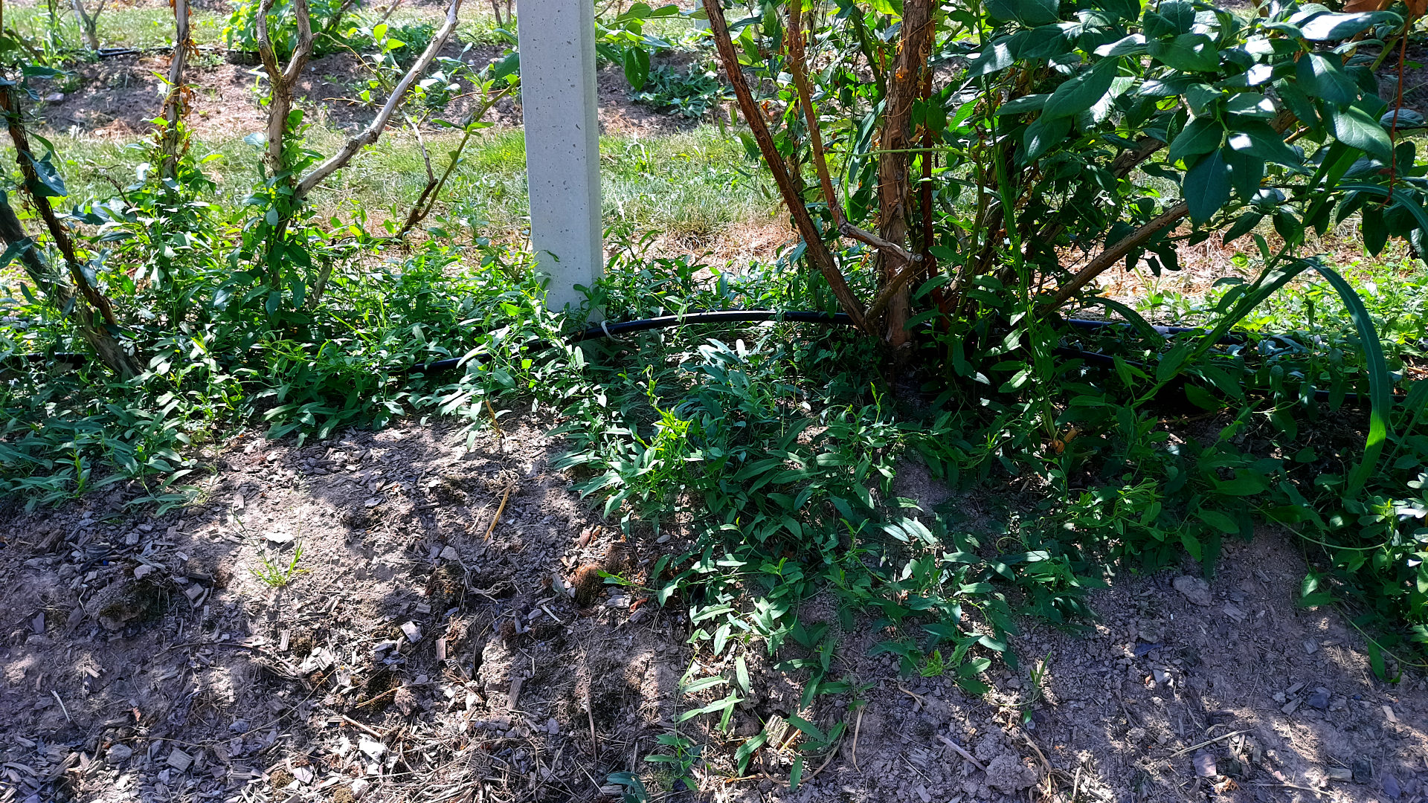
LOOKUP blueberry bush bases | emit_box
[747,163,1153,450]
[5,181,345,459]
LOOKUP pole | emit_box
[502,7,634,332]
